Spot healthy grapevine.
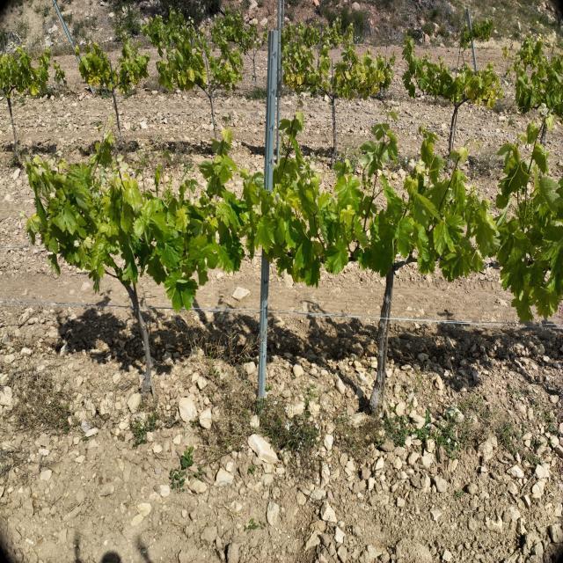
[492,136,563,338]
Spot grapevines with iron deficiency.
[257,121,498,421]
[19,117,287,400]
